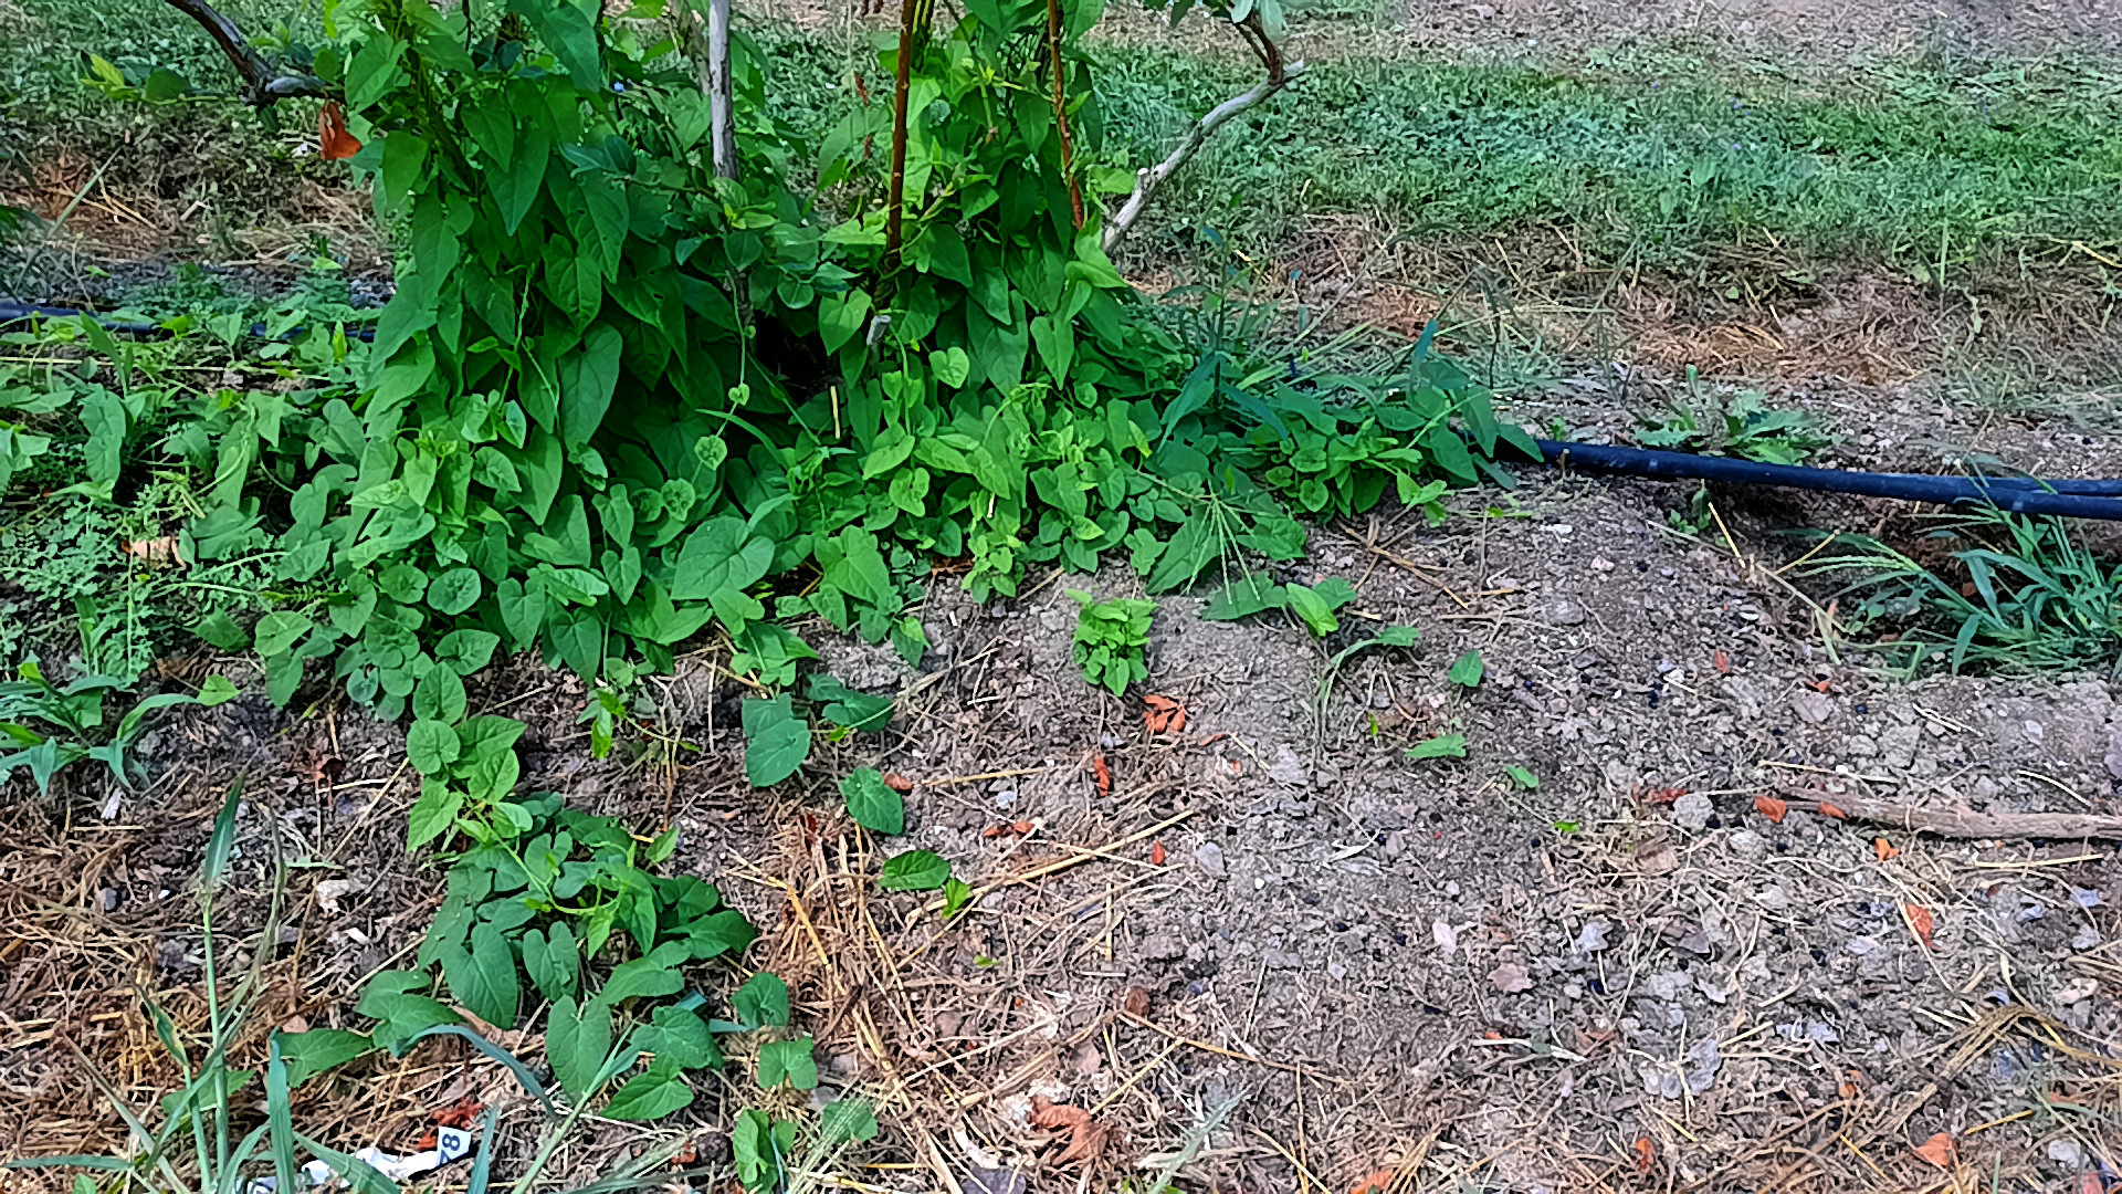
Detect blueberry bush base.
[314,147,1169,550]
